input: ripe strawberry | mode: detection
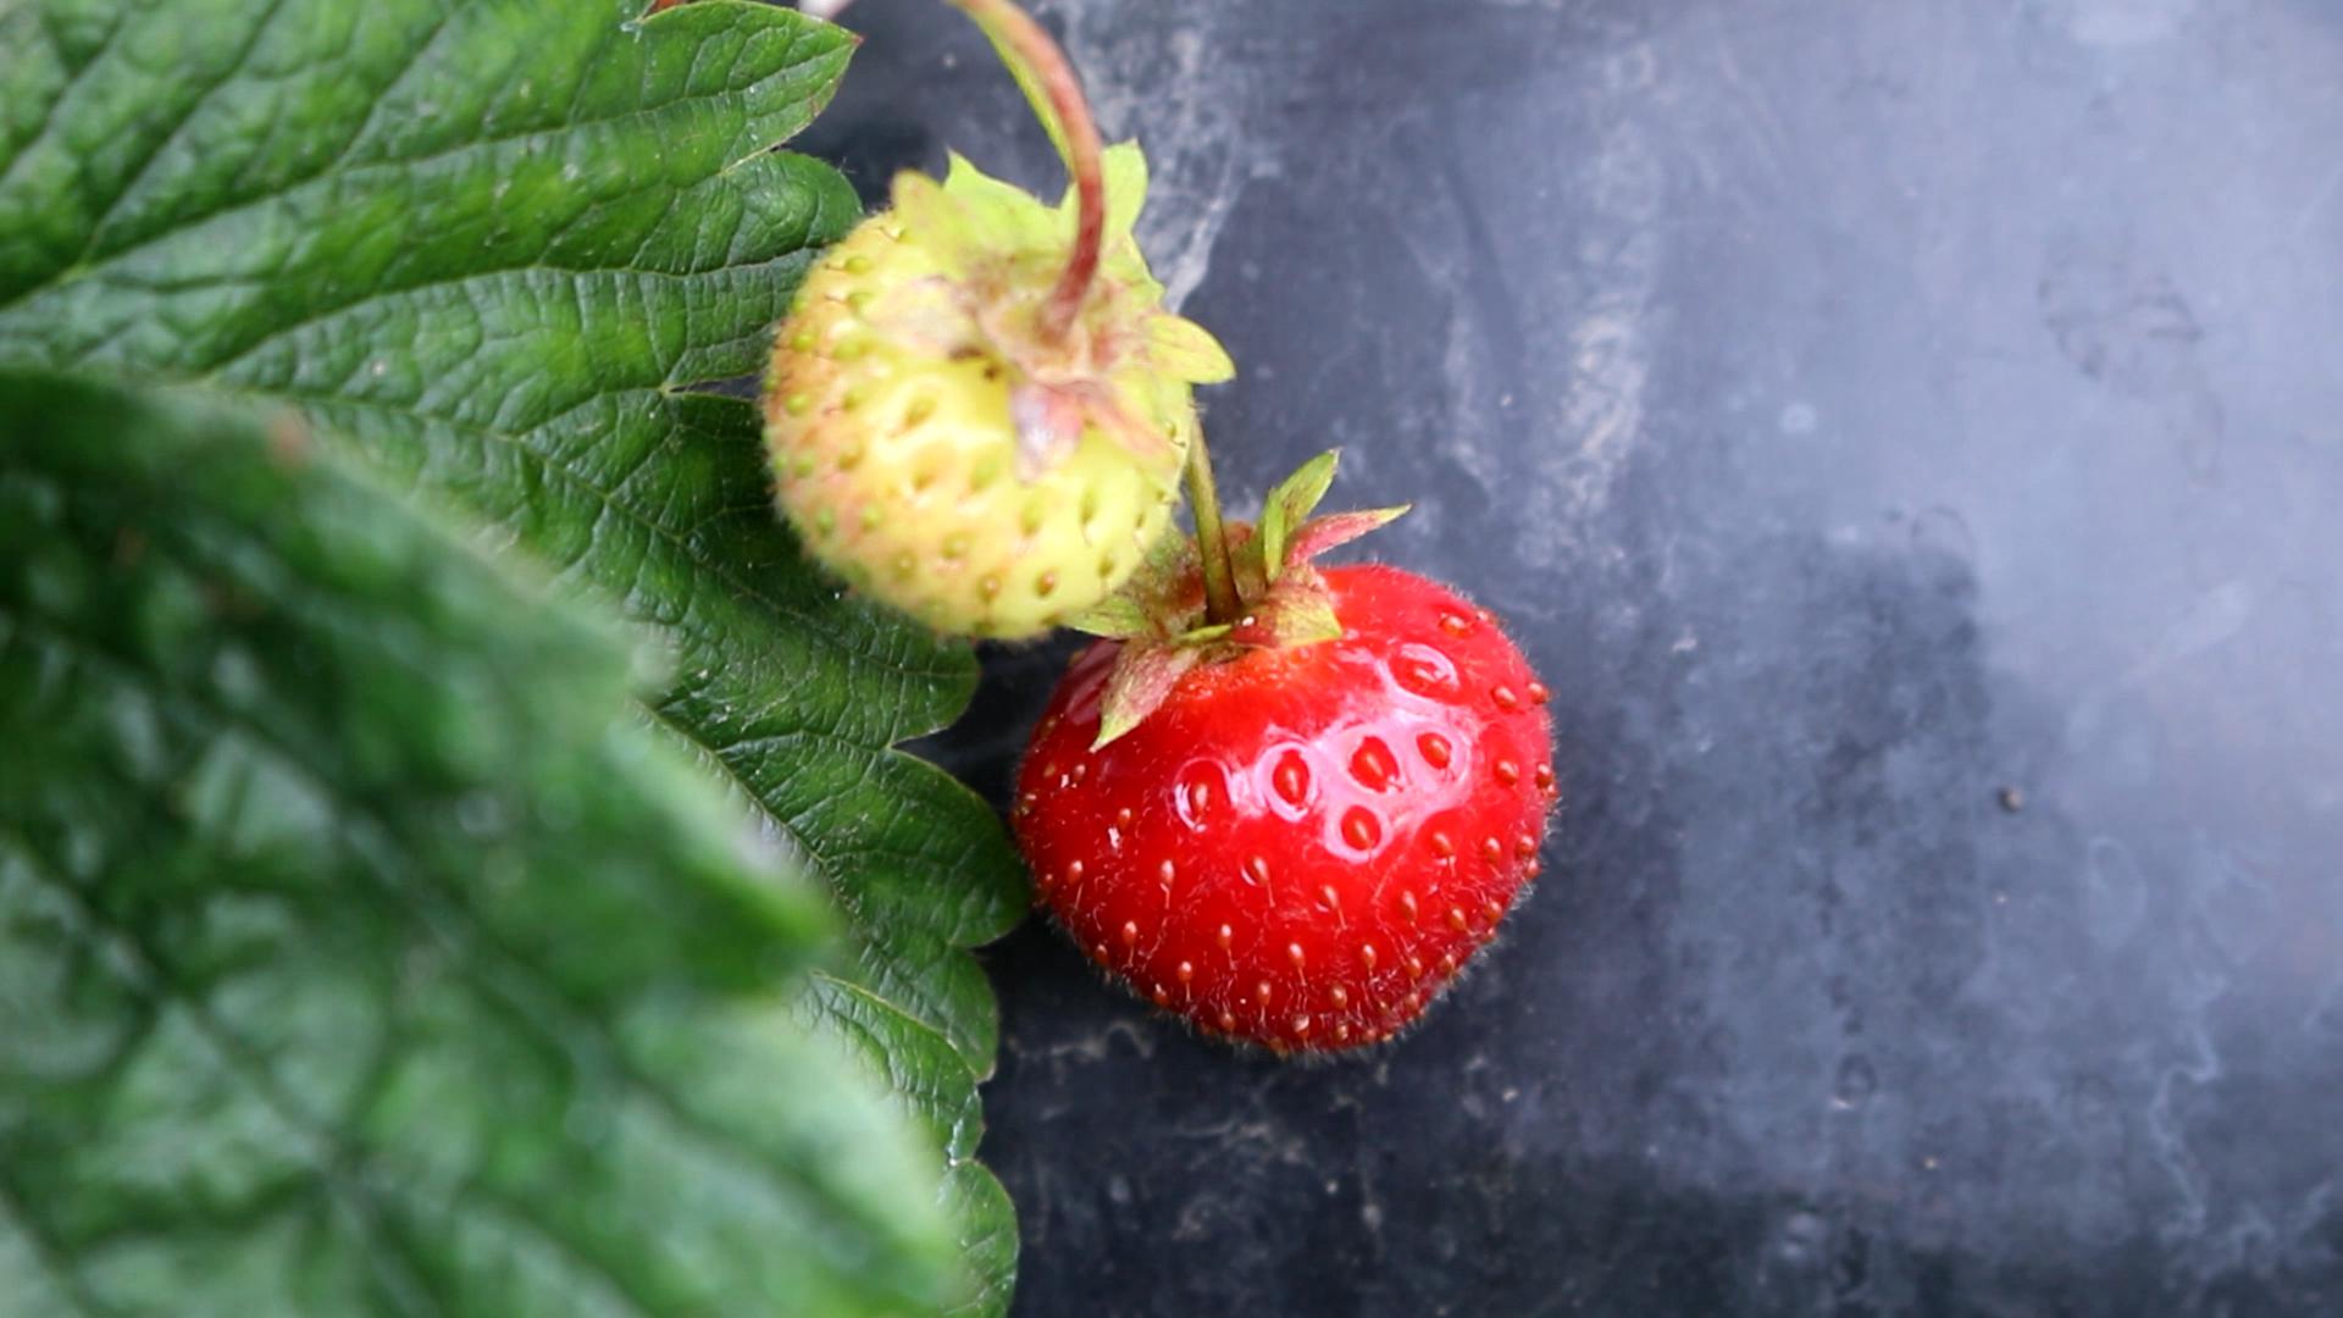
[1012,482,1689,1051]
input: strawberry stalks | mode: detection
[987,0,1123,397]
[1134,403,1376,717]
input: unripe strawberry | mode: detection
[775,177,1230,605]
